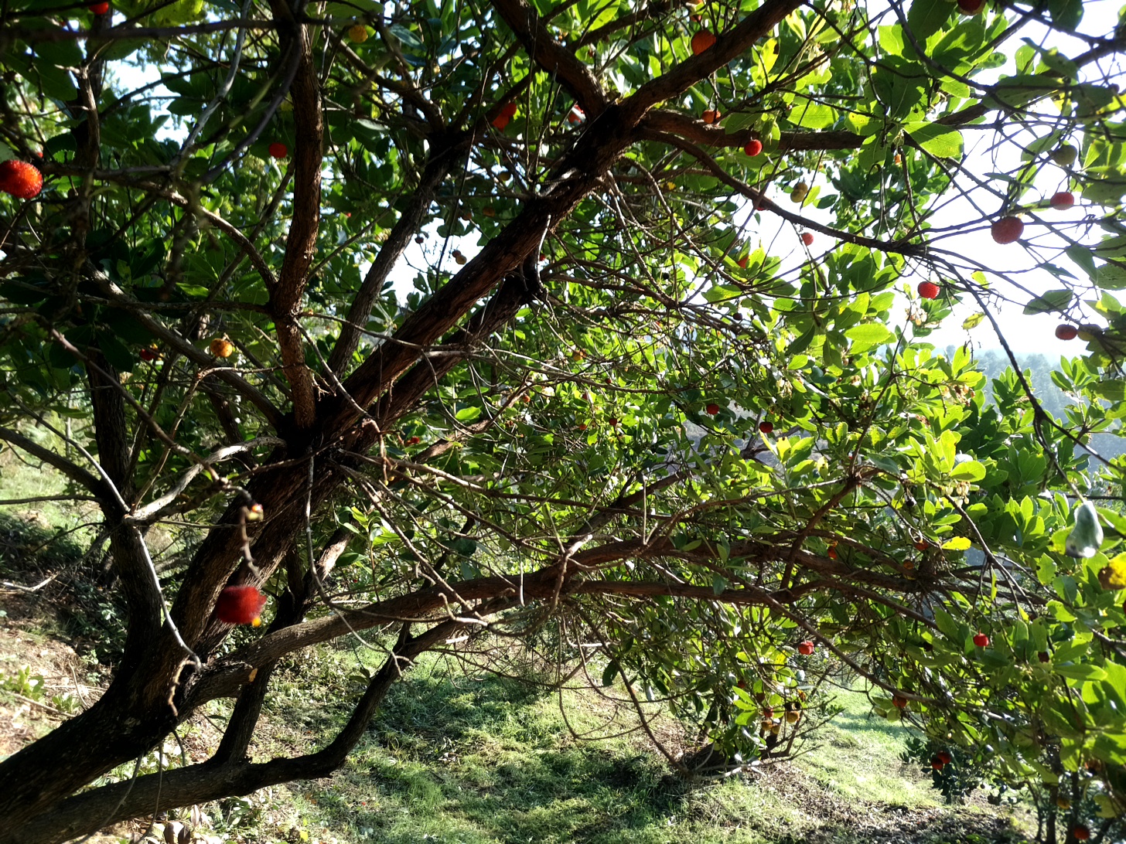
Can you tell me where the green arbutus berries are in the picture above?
[794,183,809,194]
[1052,144,1078,165]
[790,190,804,203]
[1077,323,1103,342]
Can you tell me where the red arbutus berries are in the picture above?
[1051,191,1074,210]
[991,216,1024,243]
[916,280,941,300]
[1073,823,1090,840]
[268,141,288,158]
[914,538,929,550]
[972,633,990,647]
[609,417,618,425]
[605,378,612,384]
[930,756,945,770]
[0,158,45,201]
[213,584,266,625]
[936,752,951,764]
[759,421,774,433]
[799,232,814,246]
[409,436,420,444]
[706,403,720,415]
[797,639,815,655]
[826,545,841,560]
[501,101,517,117]
[736,253,753,270]
[892,694,906,707]
[1054,322,1077,341]
[691,29,716,55]
[579,423,587,431]
[738,680,746,689]
[700,109,721,124]
[744,138,763,158]
[490,113,510,129]
[539,254,545,261]
[763,707,773,717]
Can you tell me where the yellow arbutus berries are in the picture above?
[348,24,368,43]
[211,337,232,358]
[456,255,467,265]
[572,350,584,361]
[771,723,781,734]
[786,709,799,723]
[482,207,495,216]
[760,721,772,731]
[1054,796,1070,811]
